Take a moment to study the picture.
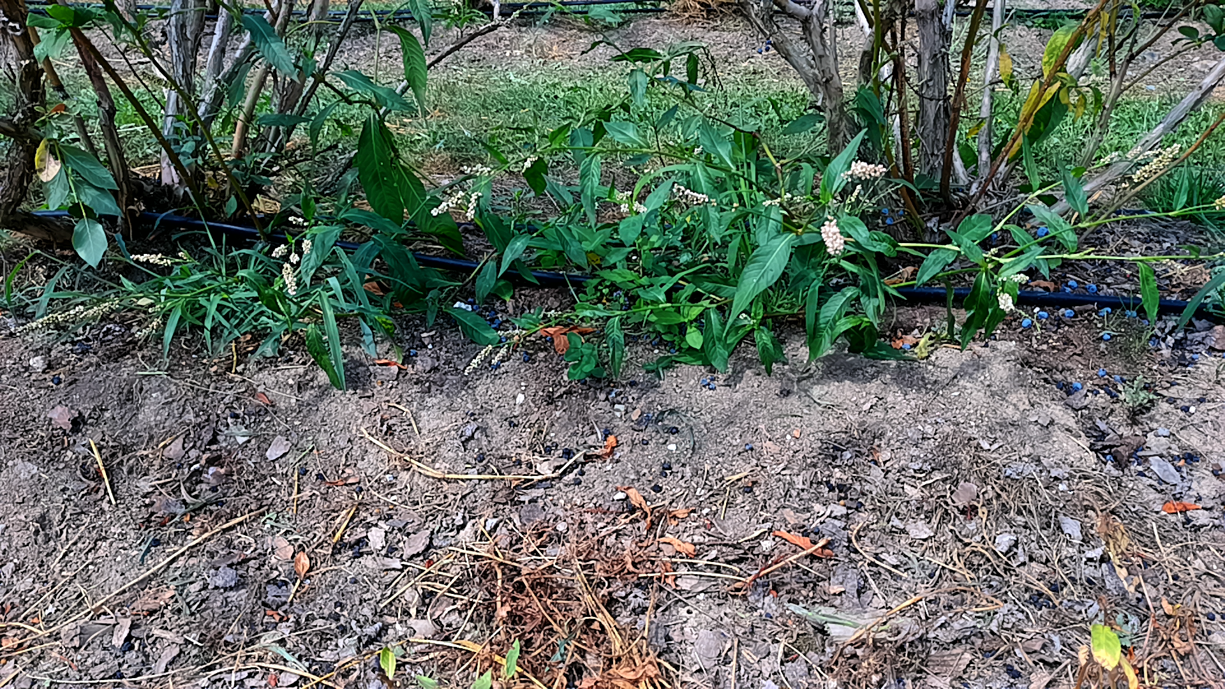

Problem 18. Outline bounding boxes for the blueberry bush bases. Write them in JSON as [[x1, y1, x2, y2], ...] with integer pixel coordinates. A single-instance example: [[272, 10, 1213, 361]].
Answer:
[[92, 86, 373, 295], [821, 55, 1195, 341]]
